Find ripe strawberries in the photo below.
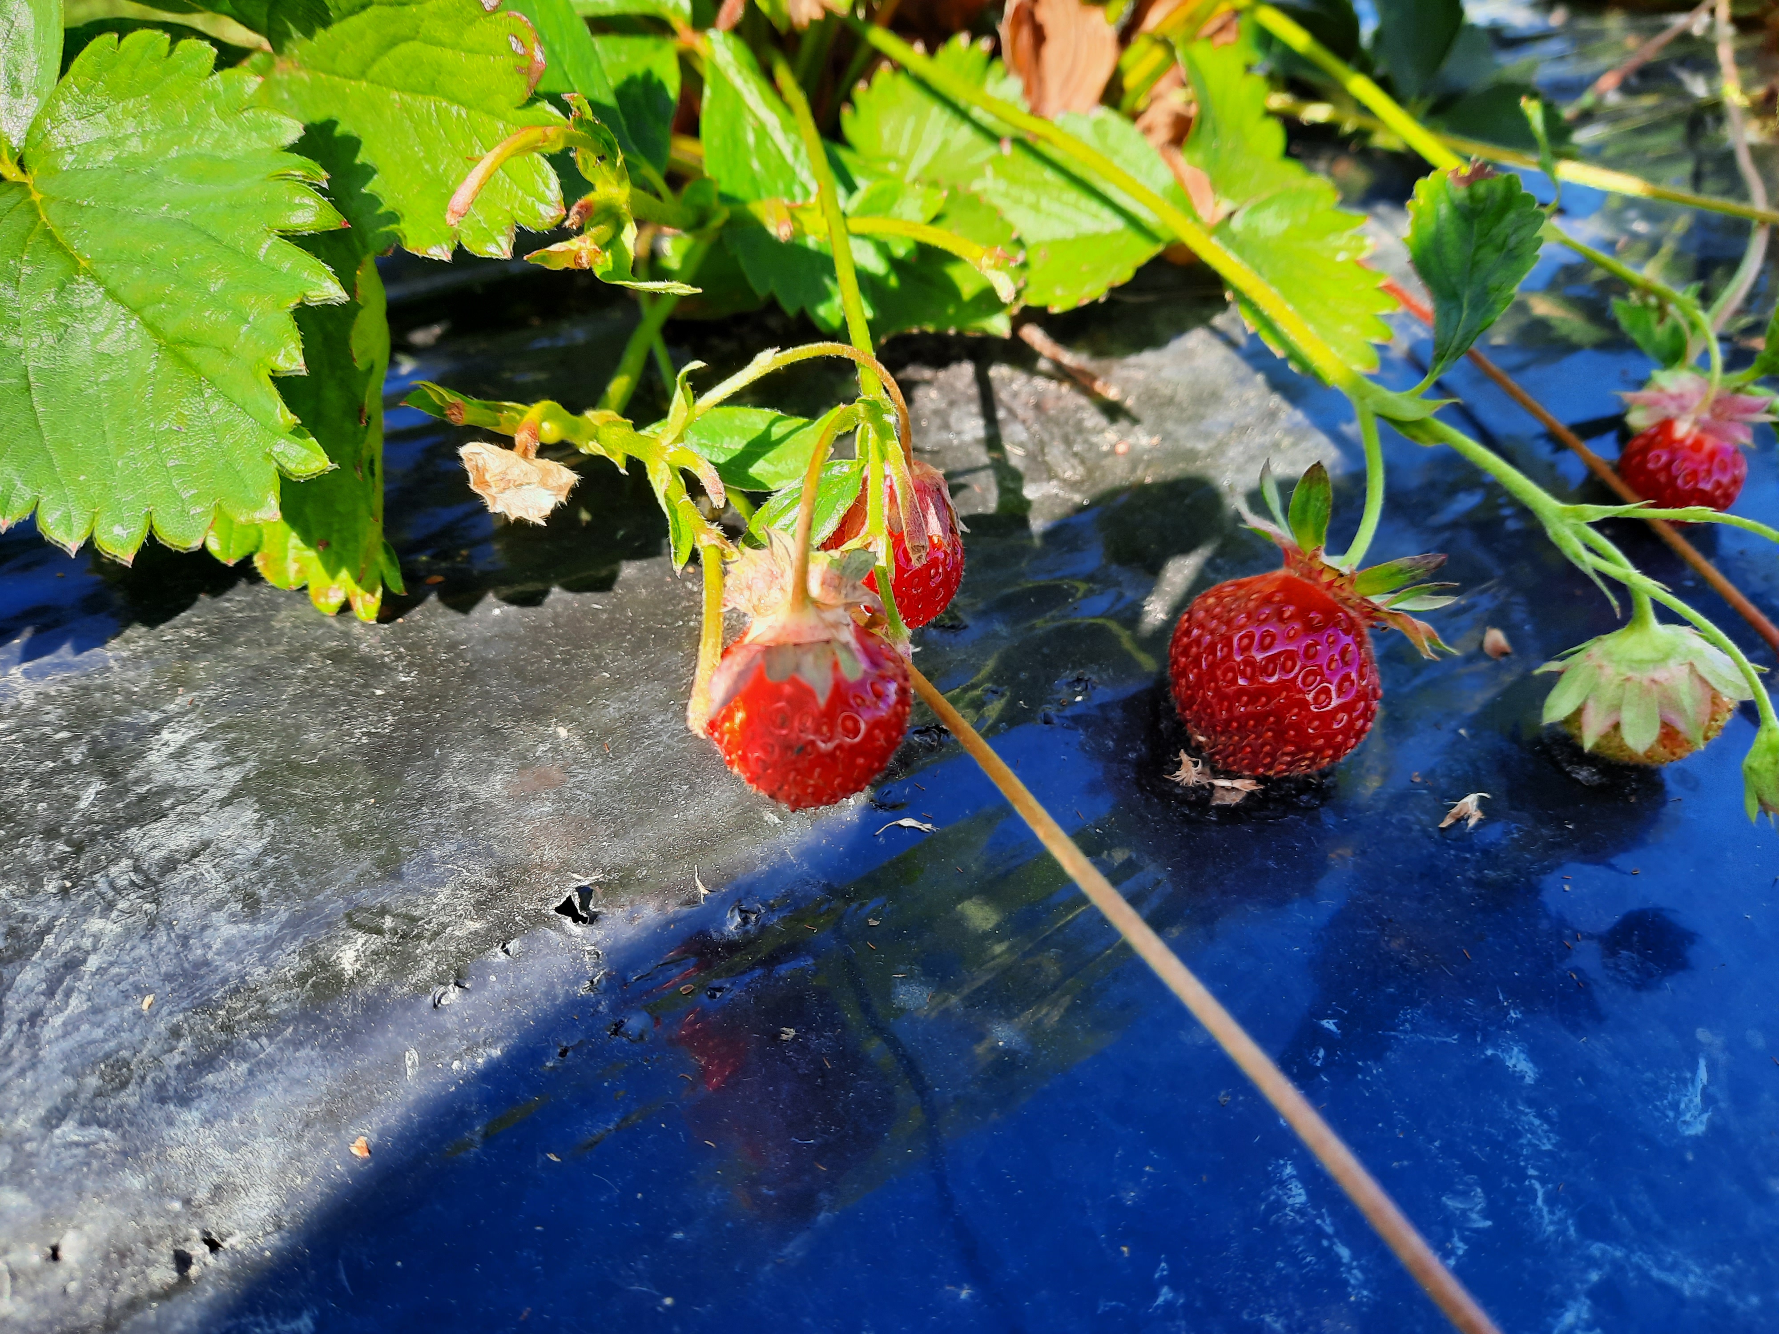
[711,610,896,811]
[1185,564,1386,775]
[801,472,957,626]
[1639,421,1752,506]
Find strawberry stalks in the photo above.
[1304,398,1393,623]
[1606,531,1684,687]
[1681,305,1735,444]
[868,357,917,505]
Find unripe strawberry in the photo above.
[1558,647,1730,752]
